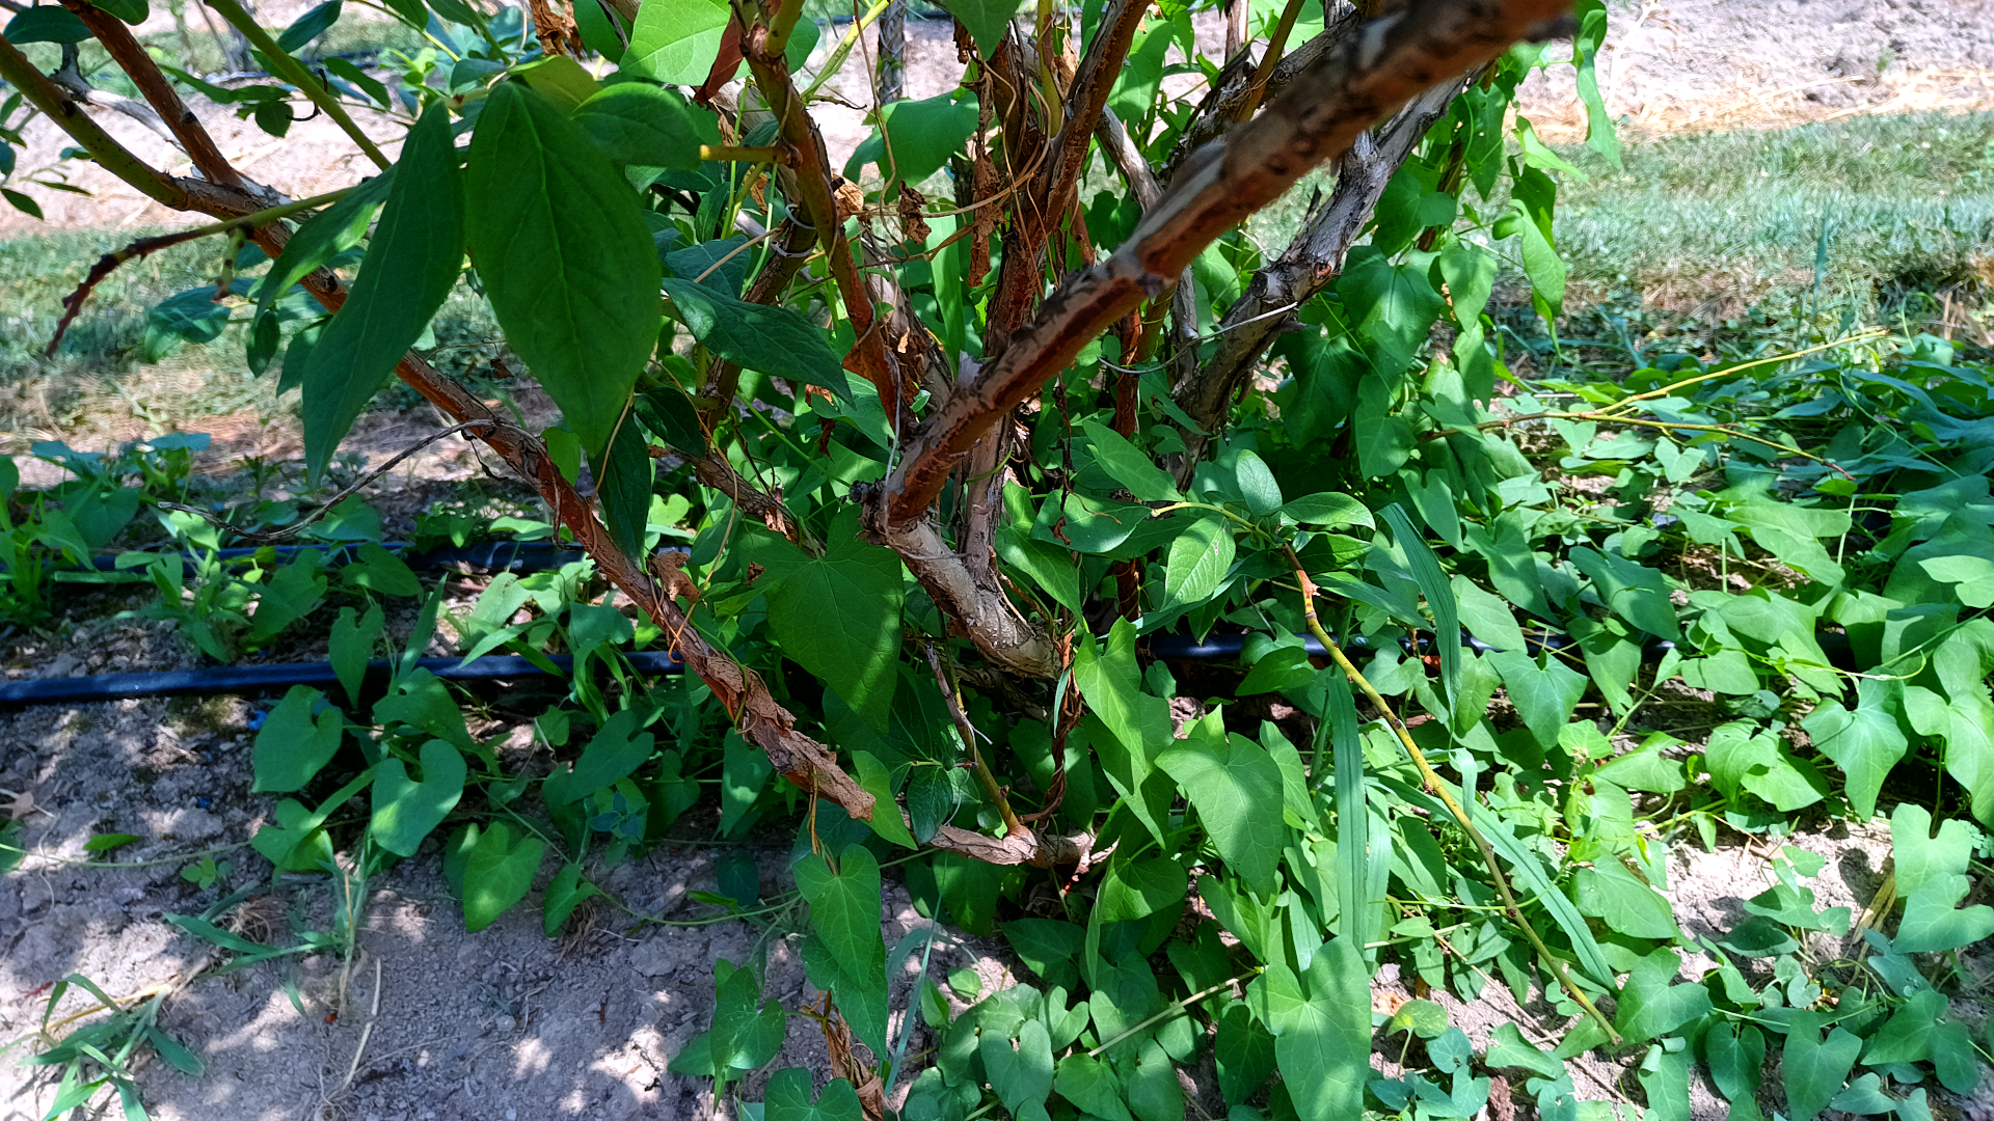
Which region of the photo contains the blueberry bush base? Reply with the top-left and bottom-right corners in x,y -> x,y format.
349,146 -> 1487,937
